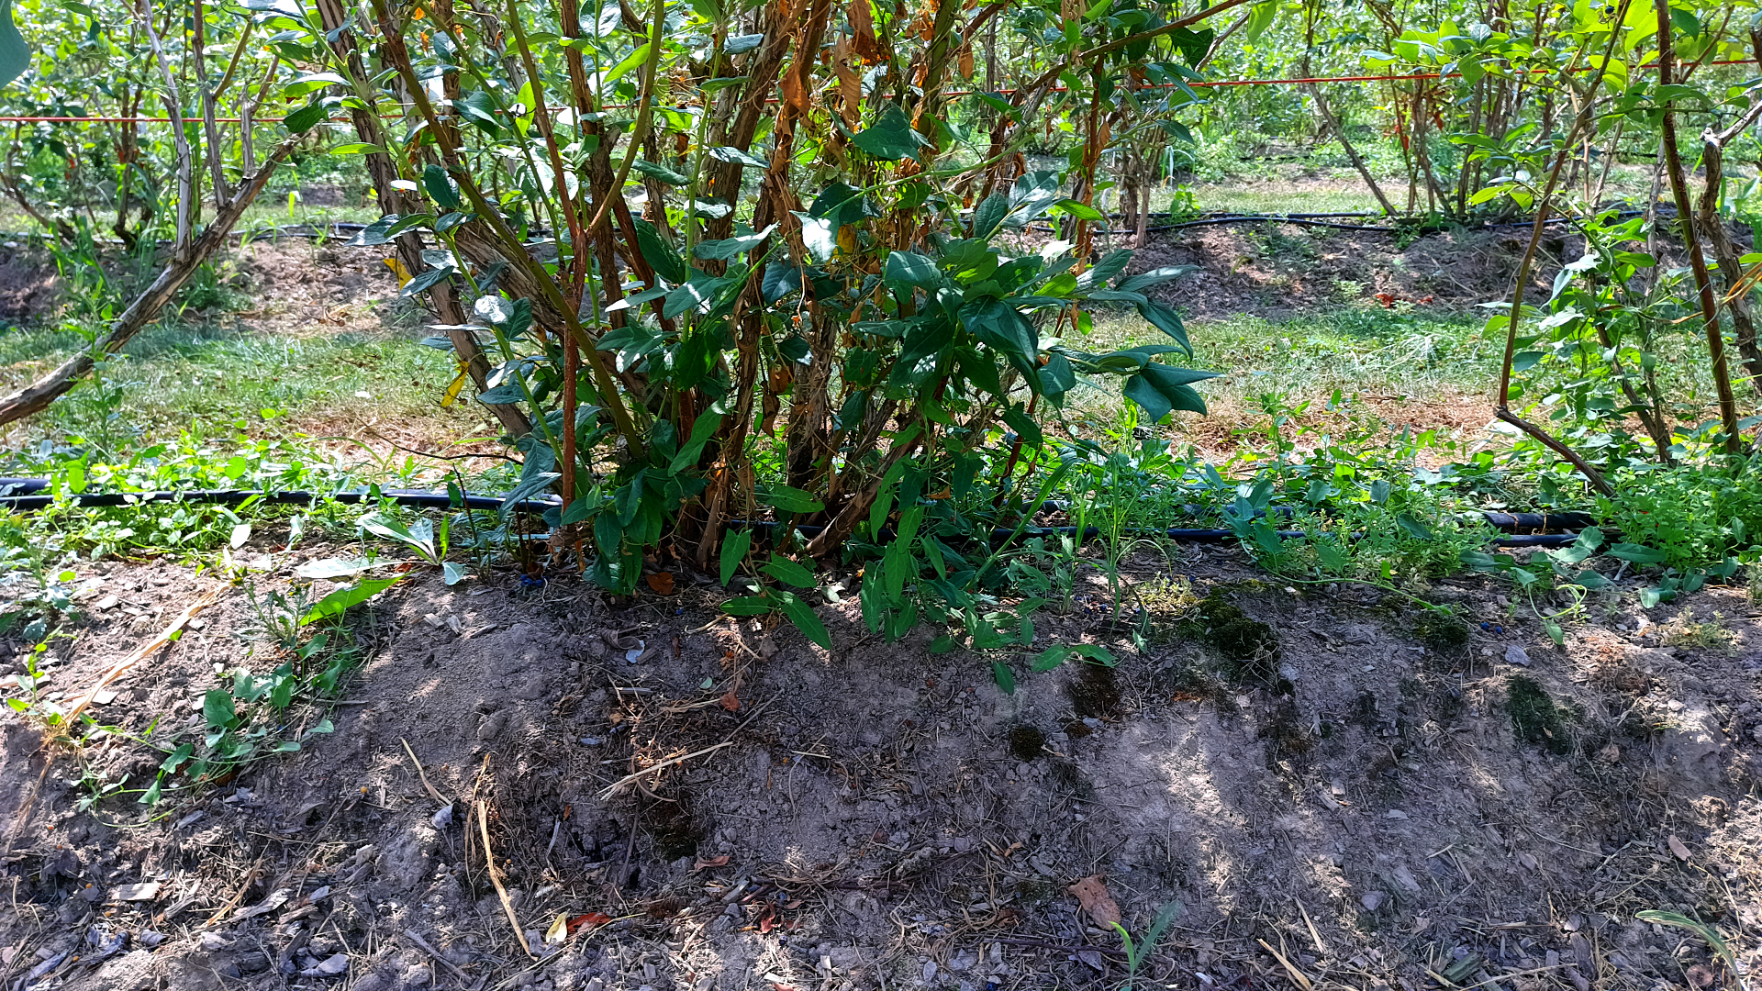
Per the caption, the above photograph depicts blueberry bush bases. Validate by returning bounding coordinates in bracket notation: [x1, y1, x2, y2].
[1058, 158, 1195, 267]
[419, 275, 1091, 689]
[1339, 145, 1535, 259]
[1516, 335, 1762, 618]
